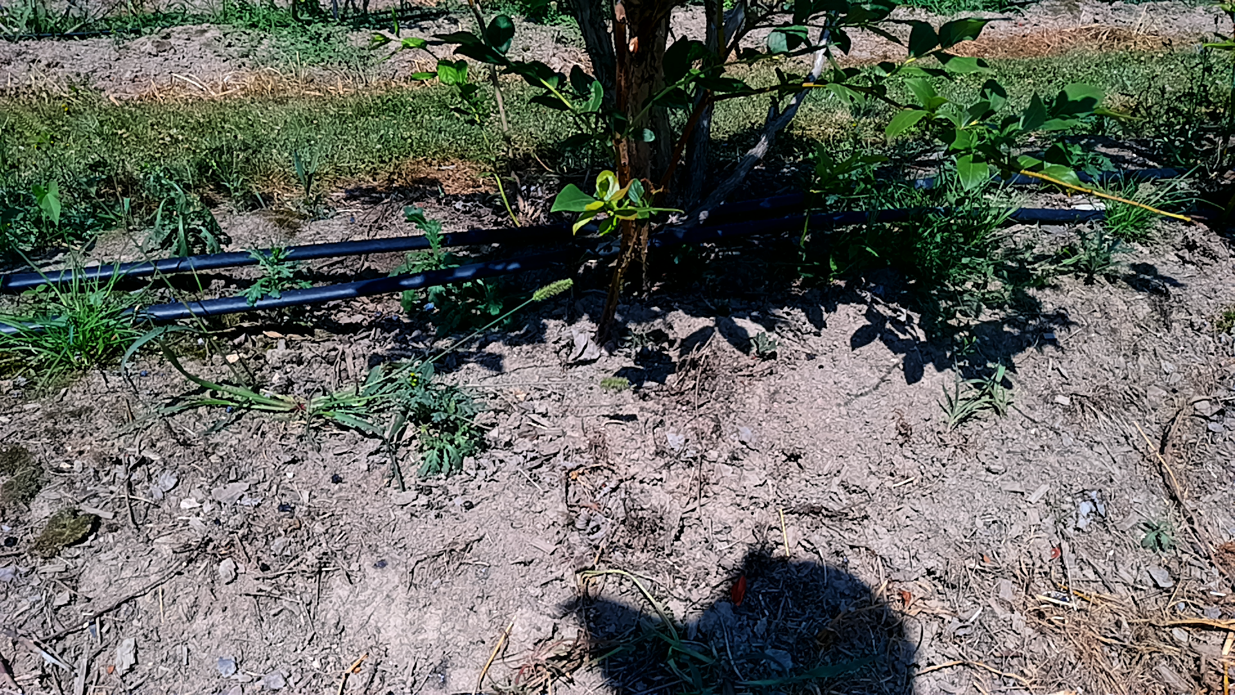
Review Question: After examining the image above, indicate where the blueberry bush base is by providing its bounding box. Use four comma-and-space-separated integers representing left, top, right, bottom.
473, 77, 832, 355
